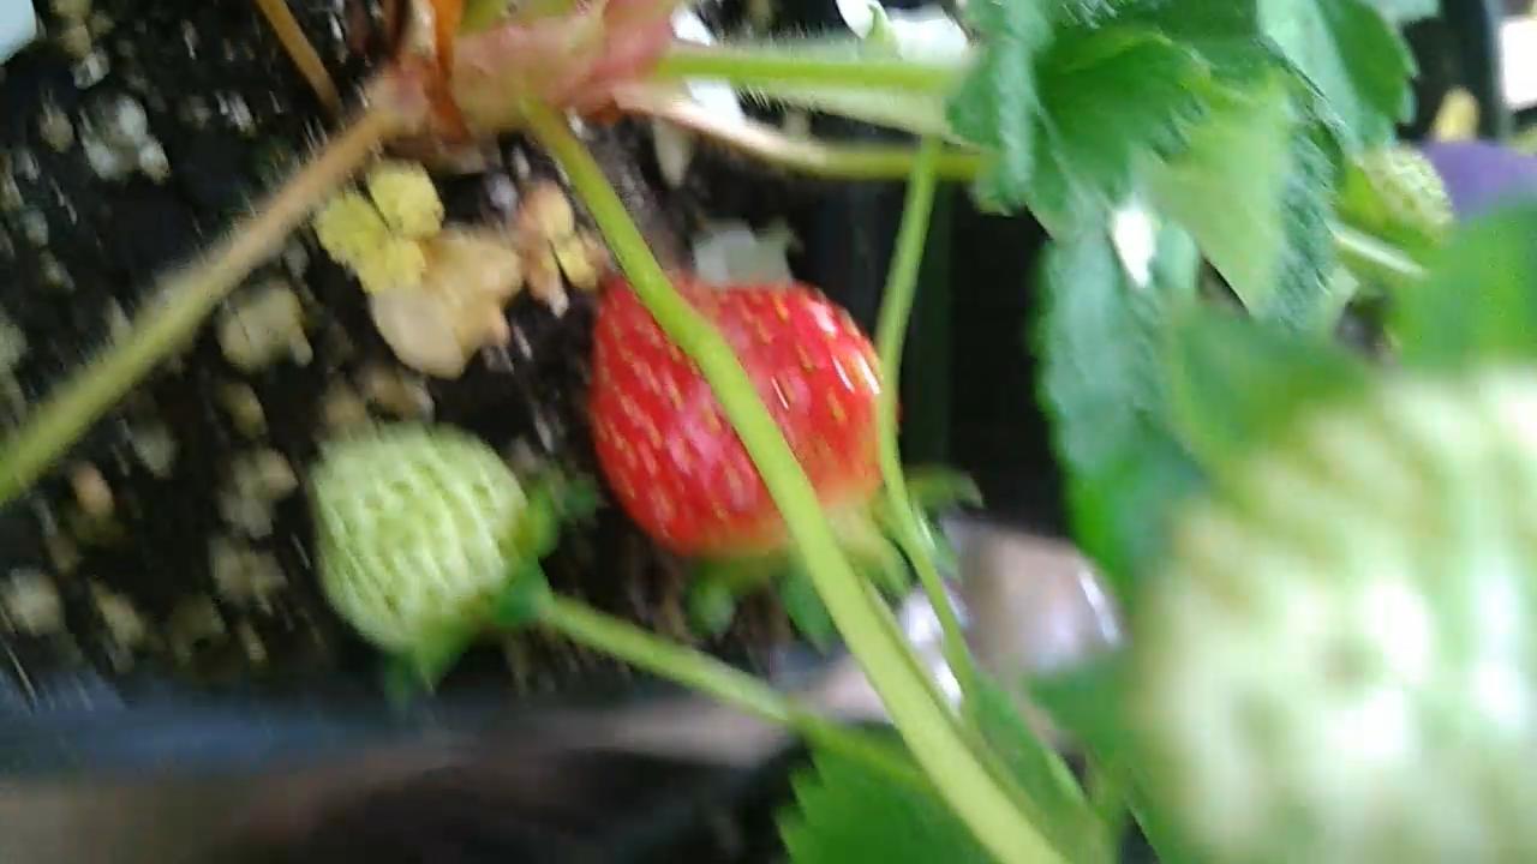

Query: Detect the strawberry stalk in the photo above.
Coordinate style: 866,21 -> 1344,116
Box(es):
466,560 -> 669,674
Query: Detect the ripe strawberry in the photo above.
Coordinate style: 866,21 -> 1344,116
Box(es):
592,289 -> 893,550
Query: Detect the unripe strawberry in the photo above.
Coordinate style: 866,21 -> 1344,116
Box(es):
306,416 -> 525,658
